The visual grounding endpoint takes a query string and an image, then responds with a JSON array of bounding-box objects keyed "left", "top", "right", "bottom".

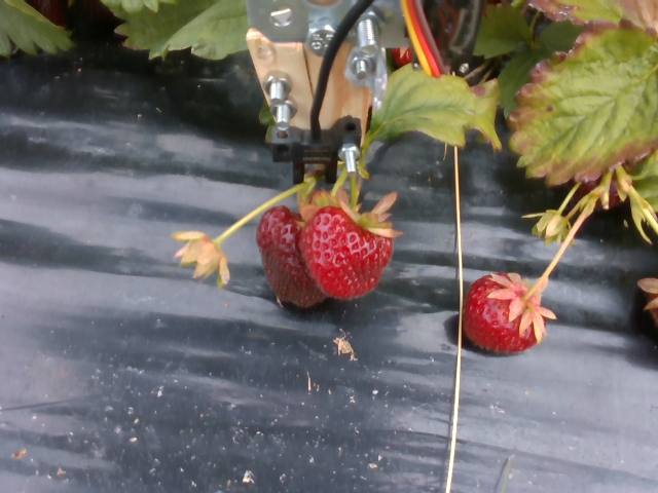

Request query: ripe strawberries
[
  {"left": 461, "top": 271, "right": 553, "bottom": 352},
  {"left": 256, "top": 205, "right": 331, "bottom": 309},
  {"left": 305, "top": 216, "right": 394, "bottom": 299}
]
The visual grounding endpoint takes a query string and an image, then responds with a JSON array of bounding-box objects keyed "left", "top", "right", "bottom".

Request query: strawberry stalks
[
  {"left": 345, "top": 138, "right": 379, "bottom": 240},
  {"left": 516, "top": 192, "right": 604, "bottom": 311}
]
